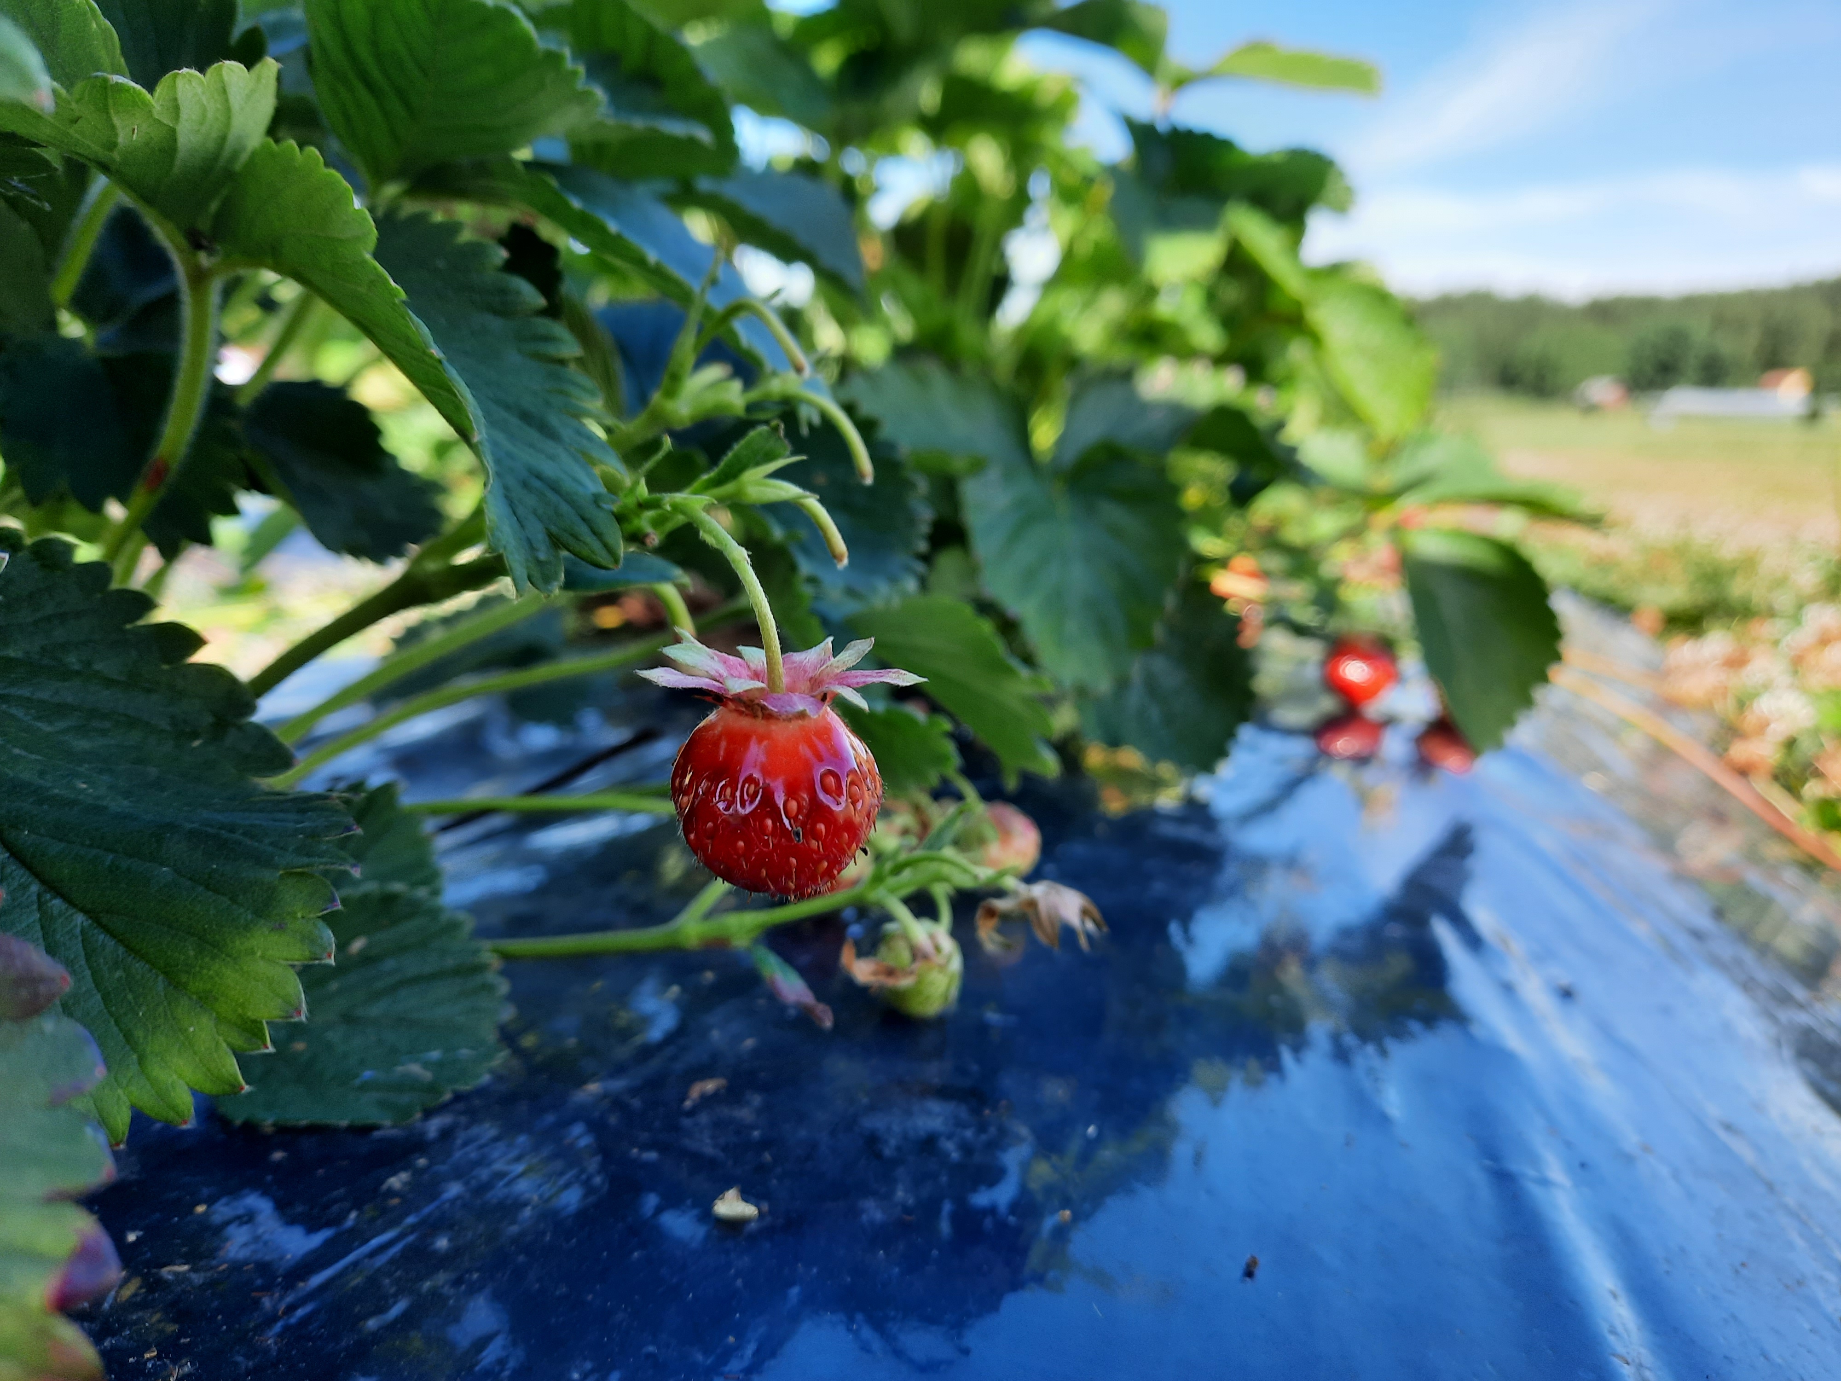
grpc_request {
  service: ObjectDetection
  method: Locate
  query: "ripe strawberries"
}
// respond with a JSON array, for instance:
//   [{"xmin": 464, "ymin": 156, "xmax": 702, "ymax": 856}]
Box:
[
  {"xmin": 1326, "ymin": 645, "xmax": 1401, "ymax": 709},
  {"xmin": 671, "ymin": 707, "xmax": 876, "ymax": 889}
]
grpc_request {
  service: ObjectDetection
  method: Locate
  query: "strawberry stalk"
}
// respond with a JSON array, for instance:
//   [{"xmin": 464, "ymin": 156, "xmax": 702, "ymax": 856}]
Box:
[{"xmin": 692, "ymin": 529, "xmax": 802, "ymax": 740}]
